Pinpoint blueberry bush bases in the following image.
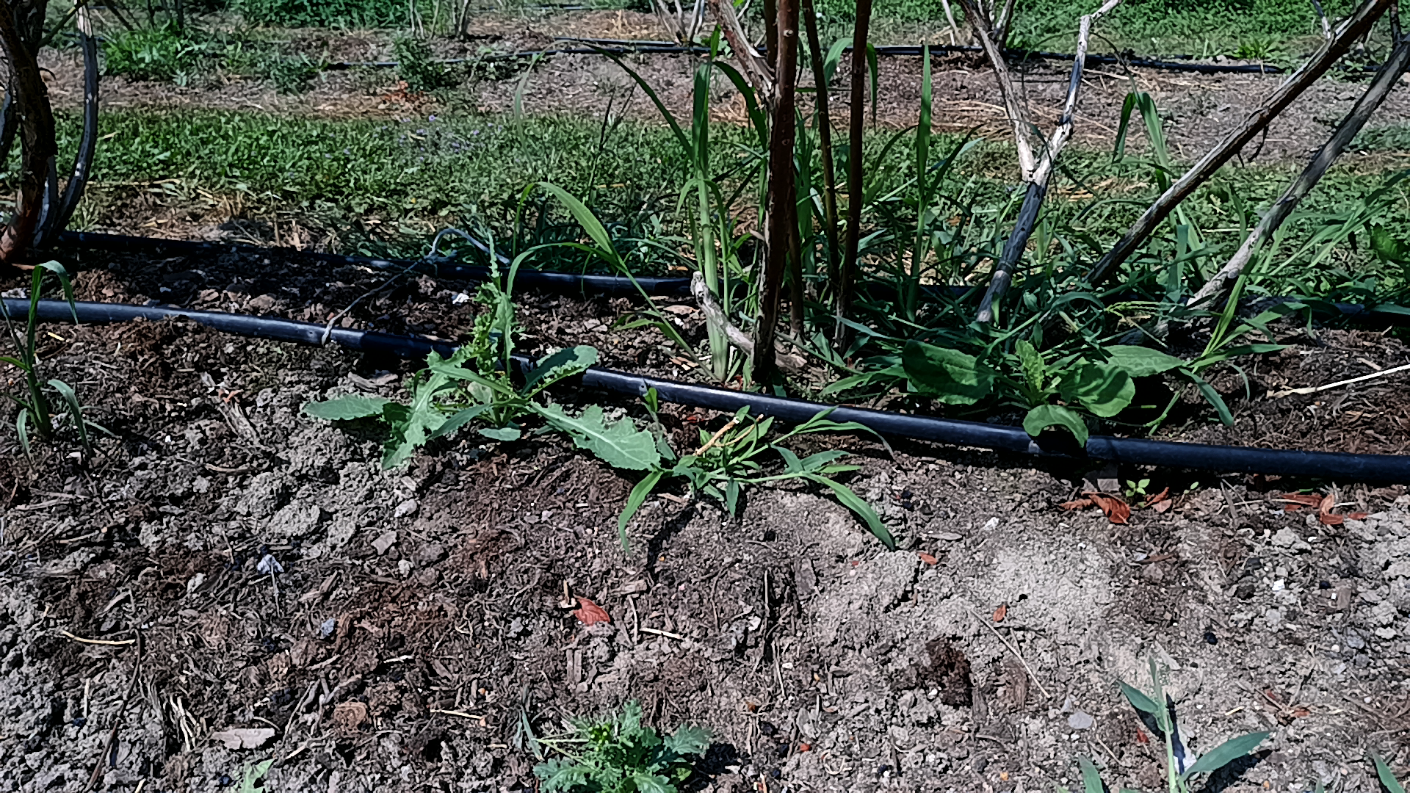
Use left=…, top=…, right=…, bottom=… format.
left=102, top=5, right=189, bottom=53
left=408, top=13, right=478, bottom=49
left=940, top=8, right=1033, bottom=58
left=624, top=136, right=1287, bottom=519
left=0, top=98, right=124, bottom=327
left=665, top=18, right=715, bottom=58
